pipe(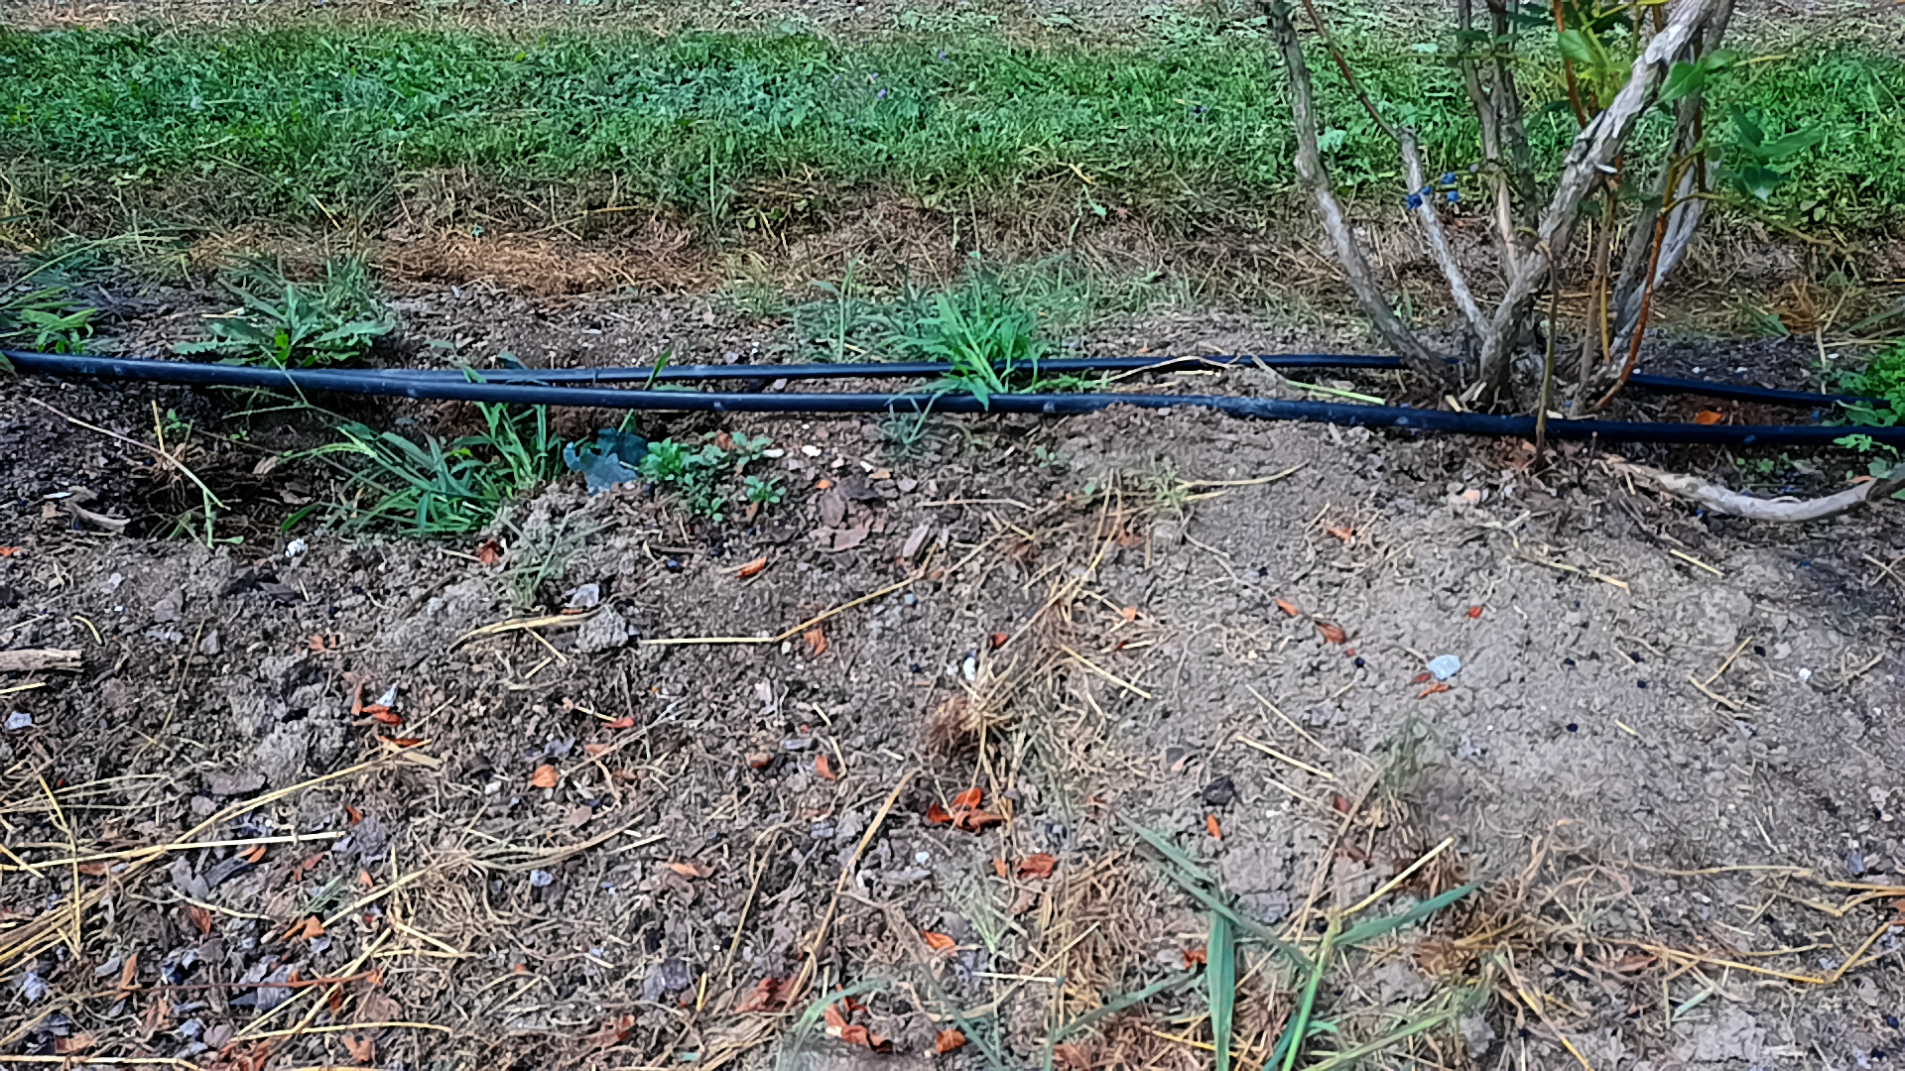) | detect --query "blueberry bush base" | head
[1283,163,1720,517]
